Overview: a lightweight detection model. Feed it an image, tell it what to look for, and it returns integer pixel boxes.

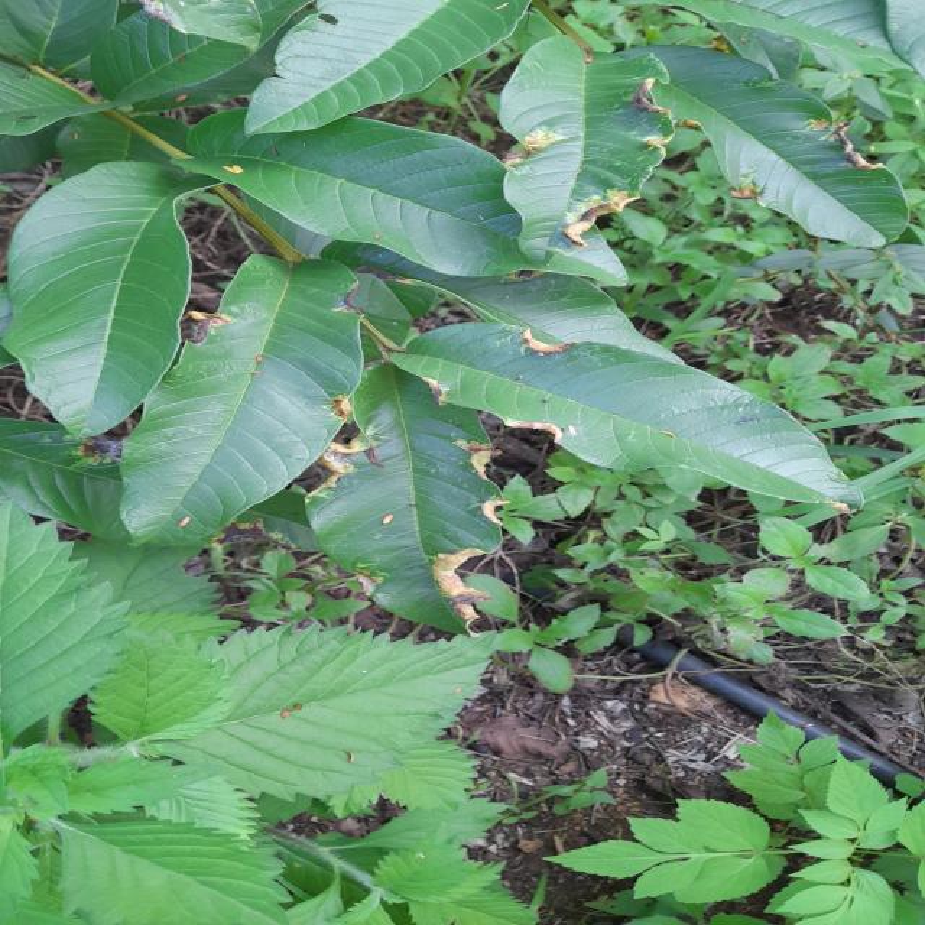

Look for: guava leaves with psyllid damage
[486,22,703,264]
[383,308,884,540]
